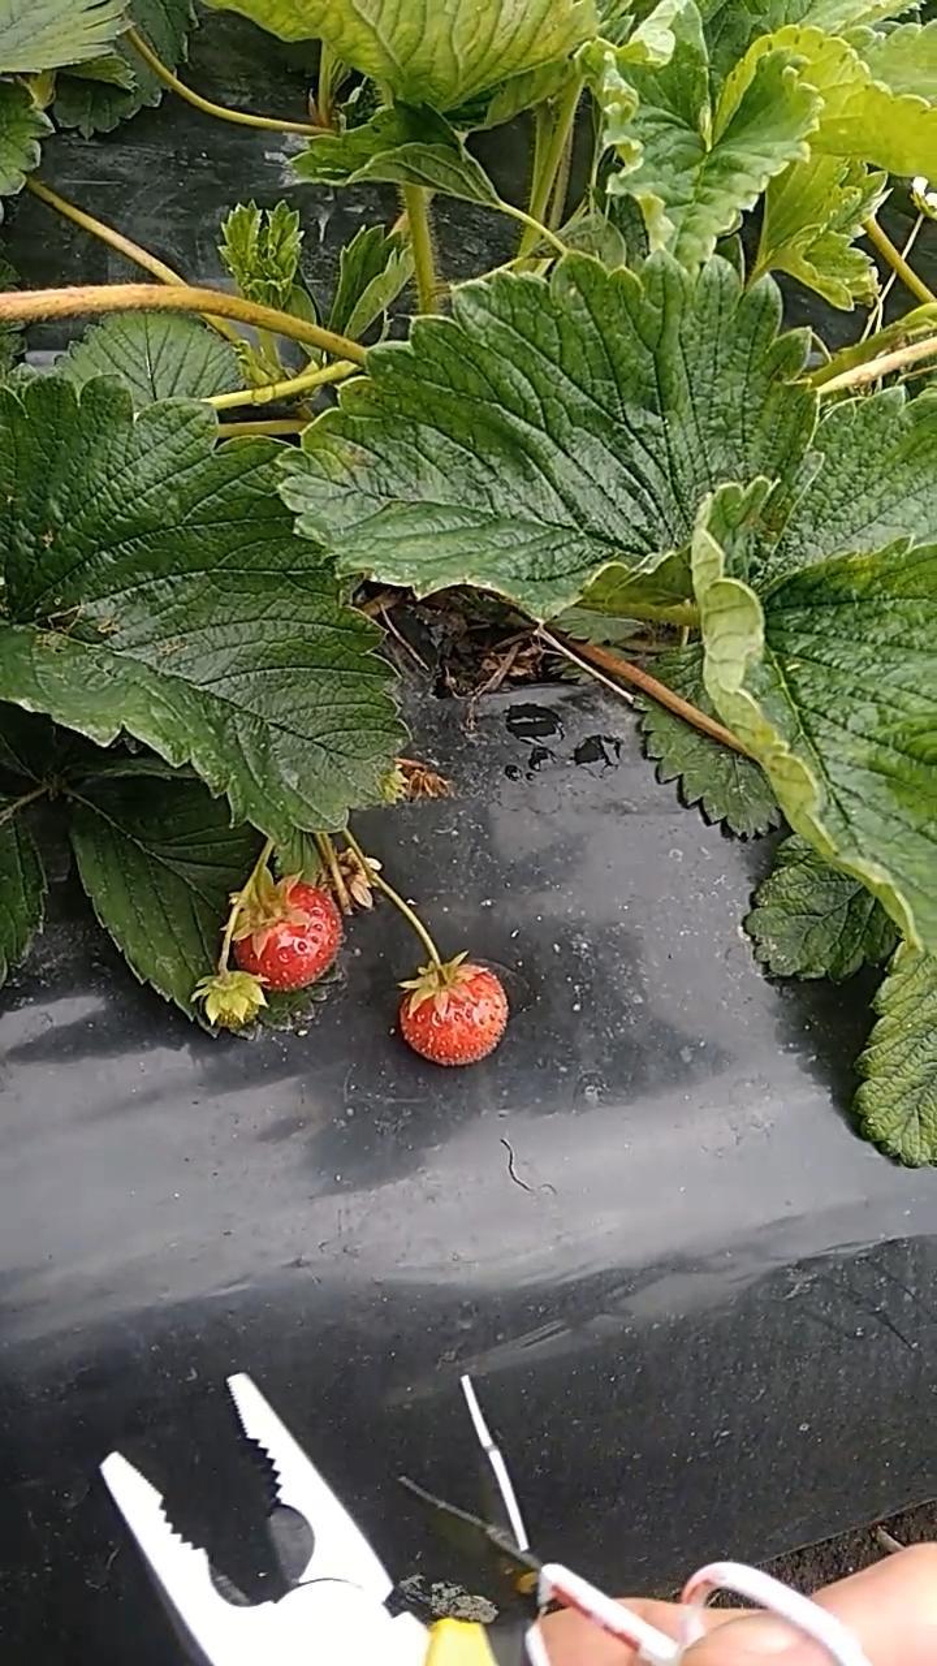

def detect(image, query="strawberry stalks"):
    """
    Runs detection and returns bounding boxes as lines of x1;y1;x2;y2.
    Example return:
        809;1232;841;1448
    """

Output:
373;847;463;990
247;840;287;925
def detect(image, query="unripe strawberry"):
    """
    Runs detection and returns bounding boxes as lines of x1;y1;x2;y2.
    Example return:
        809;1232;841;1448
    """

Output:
204;974;263;1038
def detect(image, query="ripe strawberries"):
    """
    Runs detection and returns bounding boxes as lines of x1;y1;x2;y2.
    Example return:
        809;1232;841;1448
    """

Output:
230;882;349;997
388;958;519;1074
